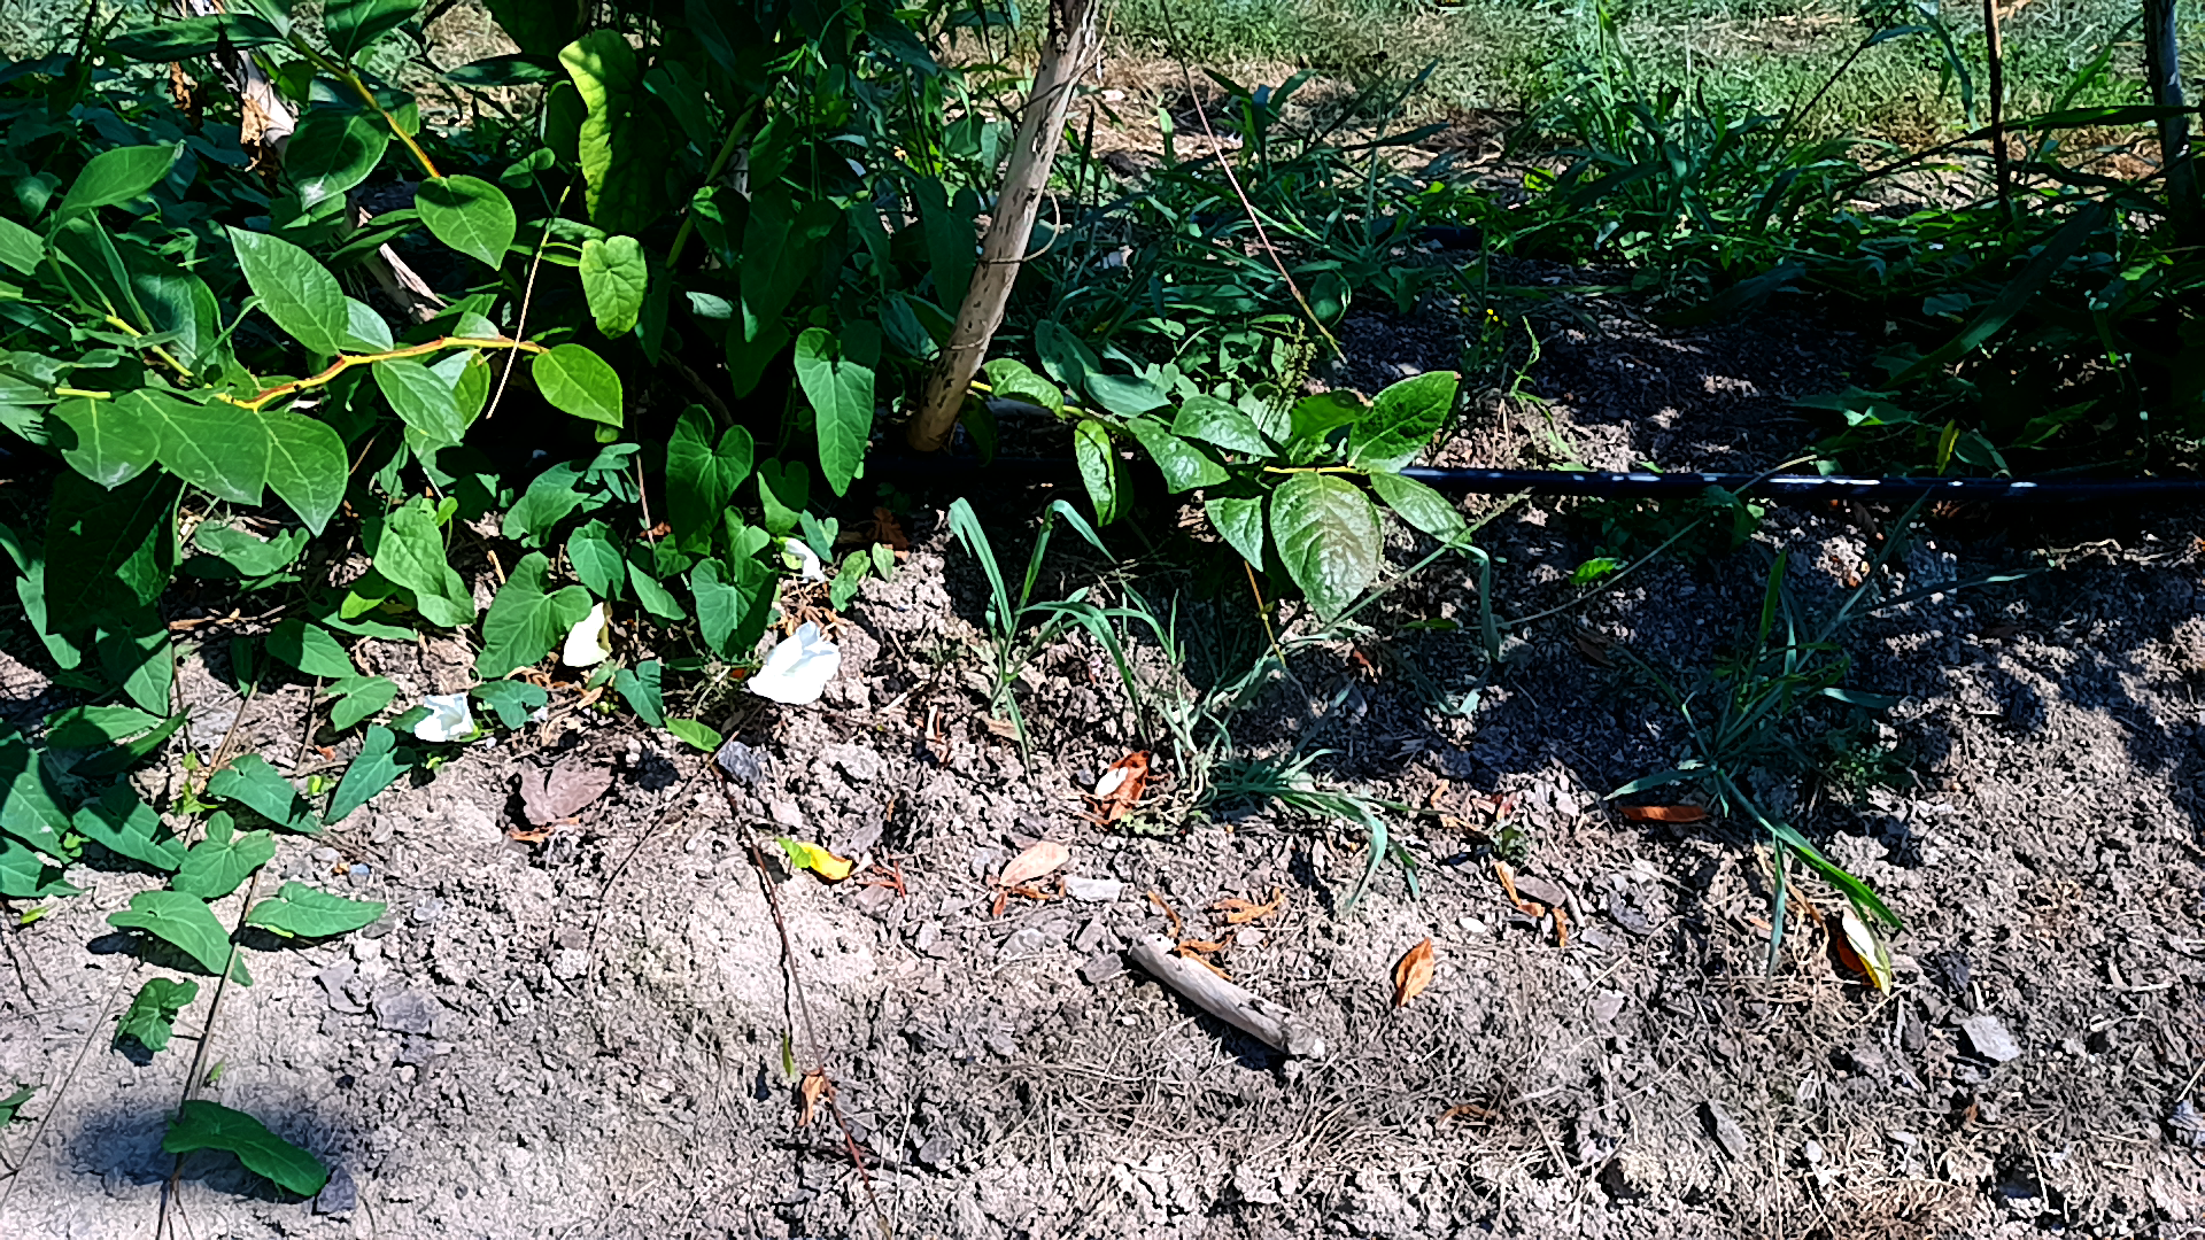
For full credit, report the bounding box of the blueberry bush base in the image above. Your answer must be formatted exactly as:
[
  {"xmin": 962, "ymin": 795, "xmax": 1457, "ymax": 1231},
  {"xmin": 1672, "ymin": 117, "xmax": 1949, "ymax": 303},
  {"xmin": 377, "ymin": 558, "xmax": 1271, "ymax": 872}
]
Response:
[{"xmin": 209, "ymin": 112, "xmax": 1094, "ymax": 711}]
